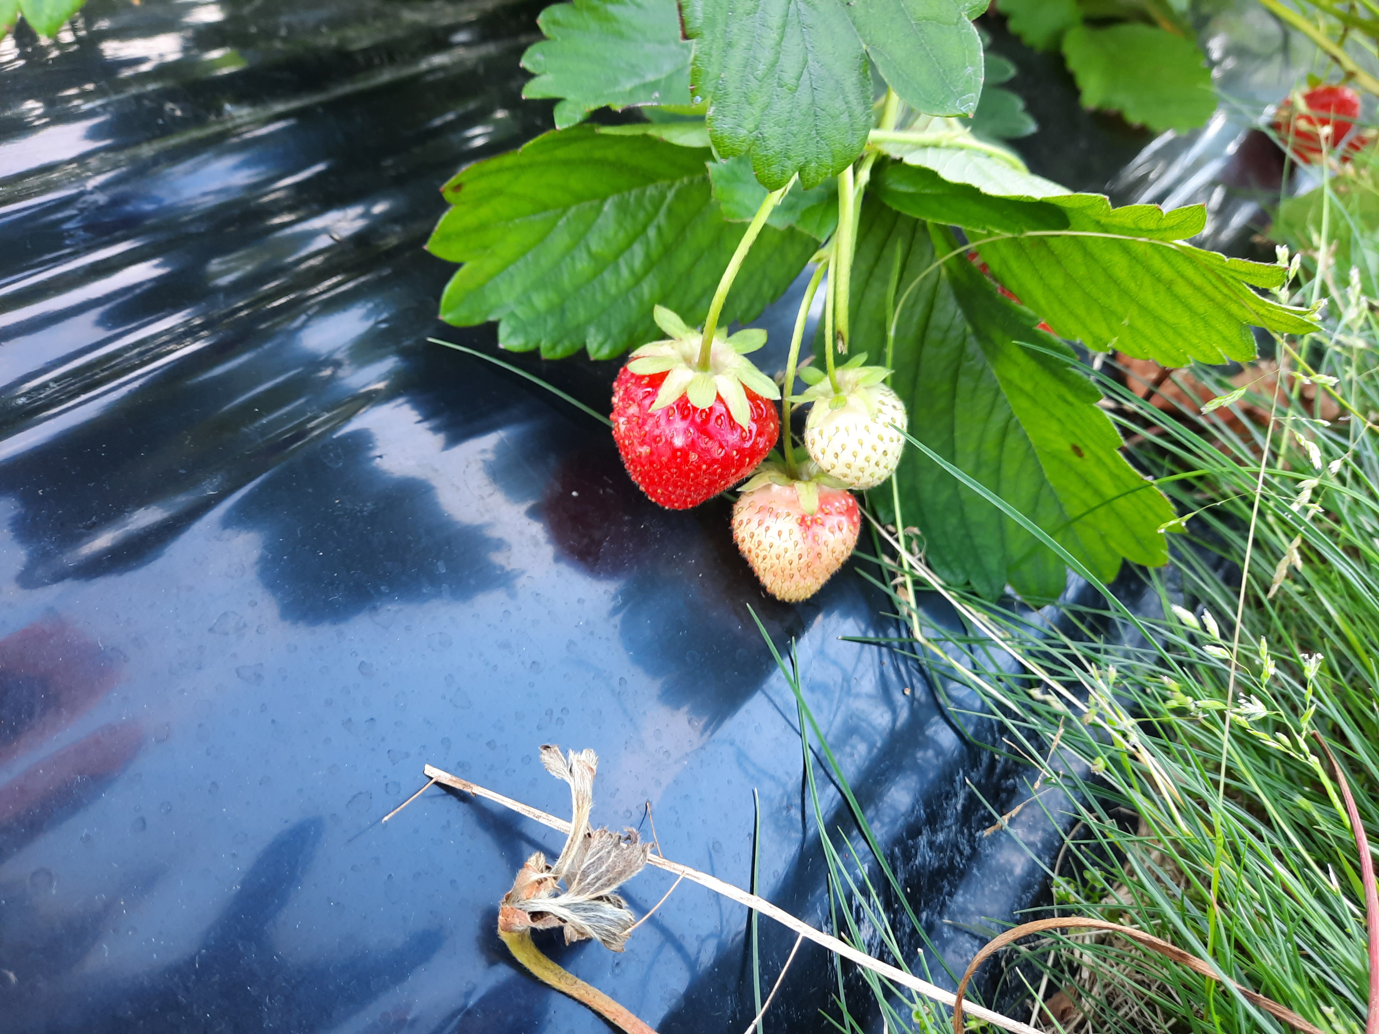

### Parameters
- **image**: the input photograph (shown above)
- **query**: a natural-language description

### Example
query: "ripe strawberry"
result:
[613,343,778,506]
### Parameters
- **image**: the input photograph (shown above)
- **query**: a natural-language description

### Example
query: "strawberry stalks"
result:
[821,212,850,399]
[769,275,825,503]
[677,177,799,399]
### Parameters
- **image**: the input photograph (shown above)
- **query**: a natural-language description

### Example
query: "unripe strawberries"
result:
[744,485,852,596]
[813,381,897,483]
